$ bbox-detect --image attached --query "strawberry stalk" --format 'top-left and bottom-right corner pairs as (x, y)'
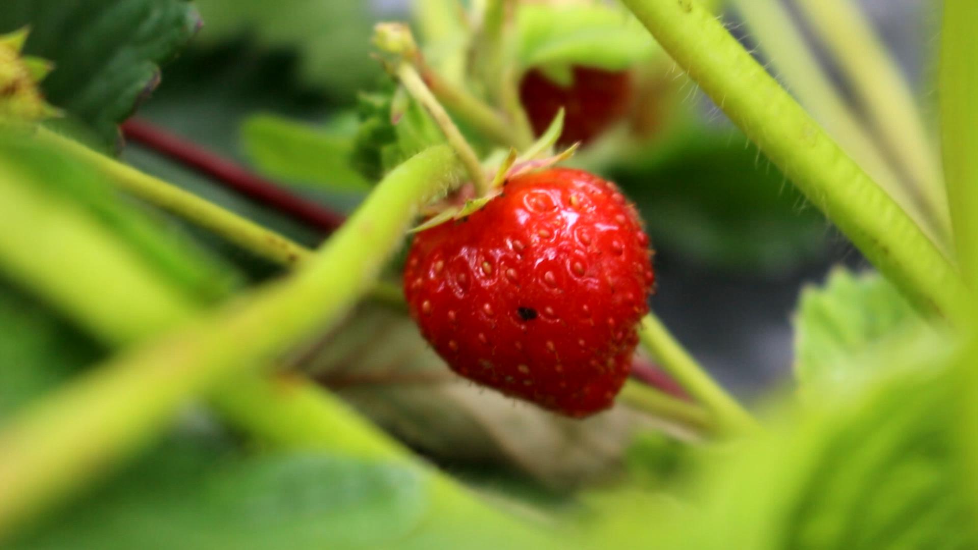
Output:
(393, 27), (504, 226)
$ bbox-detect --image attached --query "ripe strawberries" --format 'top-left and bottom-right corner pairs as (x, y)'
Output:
(499, 7), (648, 150)
(376, 157), (666, 414)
